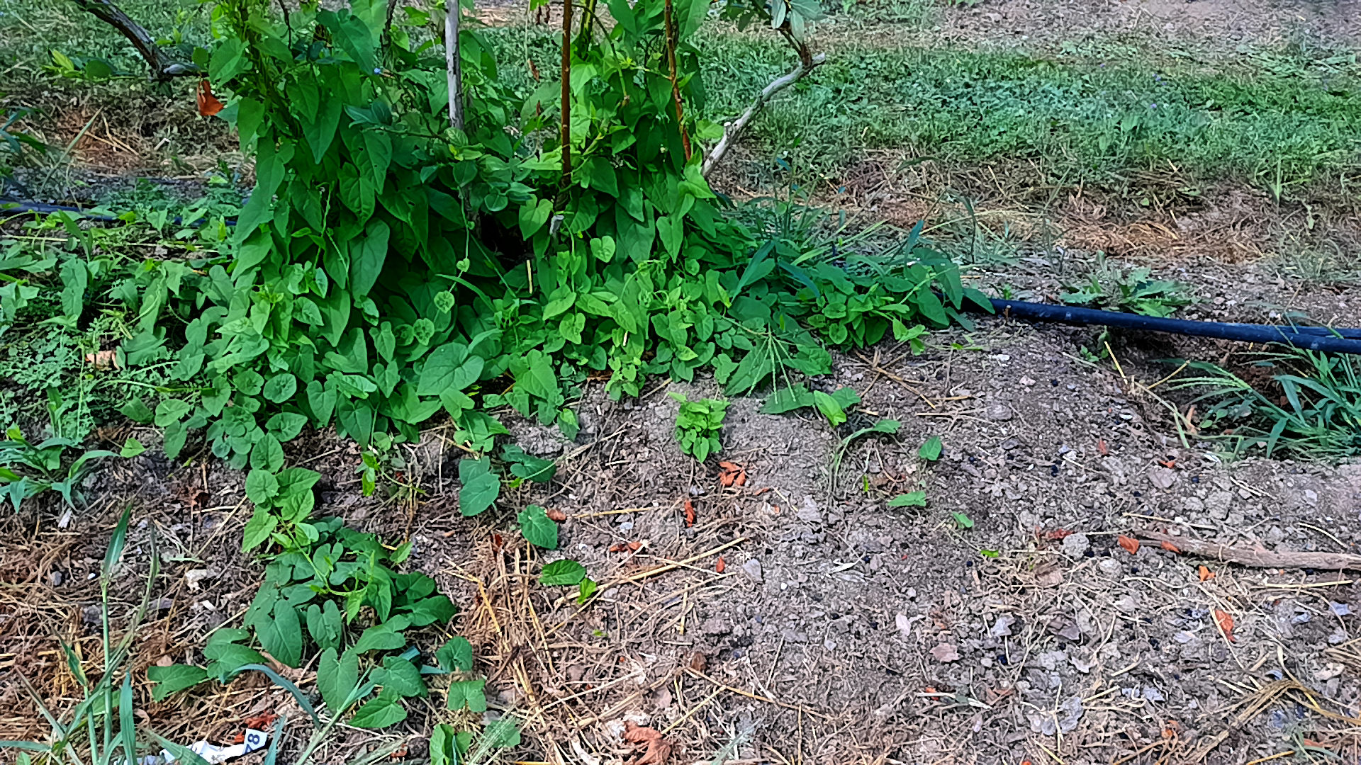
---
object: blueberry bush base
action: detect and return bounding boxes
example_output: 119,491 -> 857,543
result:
204,91 -> 758,361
